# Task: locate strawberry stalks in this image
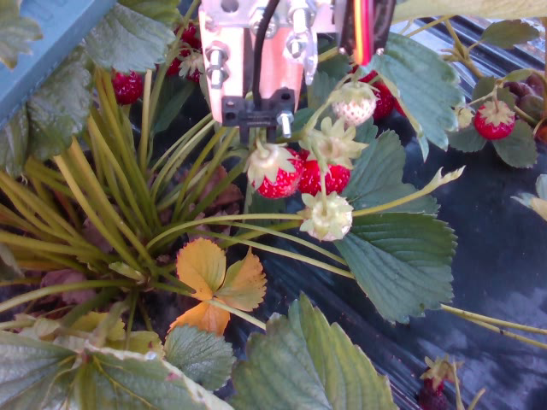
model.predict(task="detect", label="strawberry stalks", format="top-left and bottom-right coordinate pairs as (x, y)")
top-left (489, 80), bottom-right (507, 117)
top-left (316, 159), bottom-right (333, 223)
top-left (254, 123), bottom-right (271, 163)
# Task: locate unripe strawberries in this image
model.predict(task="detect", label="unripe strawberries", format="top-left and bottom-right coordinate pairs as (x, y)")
top-left (332, 85), bottom-right (375, 126)
top-left (301, 195), bottom-right (361, 240)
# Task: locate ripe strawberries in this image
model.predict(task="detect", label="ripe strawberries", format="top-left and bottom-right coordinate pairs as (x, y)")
top-left (106, 70), bottom-right (139, 104)
top-left (361, 67), bottom-right (405, 119)
top-left (187, 56), bottom-right (208, 81)
top-left (296, 152), bottom-right (353, 197)
top-left (243, 147), bottom-right (304, 197)
top-left (478, 100), bottom-right (517, 139)
top-left (164, 47), bottom-right (188, 74)
top-left (173, 18), bottom-right (200, 42)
